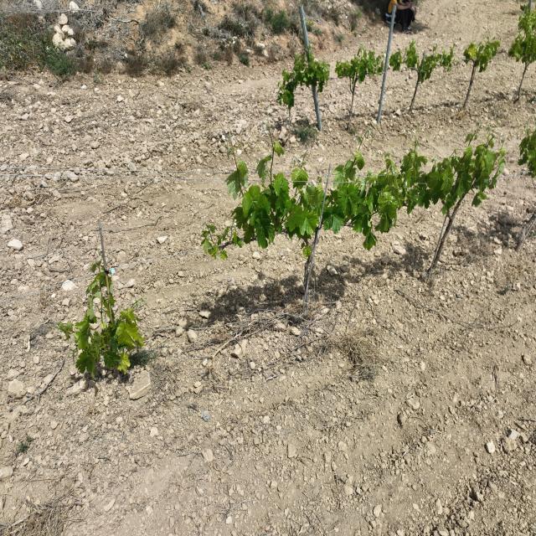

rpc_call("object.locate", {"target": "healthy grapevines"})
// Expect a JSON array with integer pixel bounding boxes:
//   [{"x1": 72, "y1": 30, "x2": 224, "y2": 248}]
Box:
[
  {"x1": 404, "y1": 124, "x2": 510, "y2": 283},
  {"x1": 198, "y1": 144, "x2": 404, "y2": 328}
]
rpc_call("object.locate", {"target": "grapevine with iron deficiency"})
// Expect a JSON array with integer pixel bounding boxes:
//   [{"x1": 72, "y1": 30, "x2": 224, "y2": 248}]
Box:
[{"x1": 56, "y1": 244, "x2": 157, "y2": 400}]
